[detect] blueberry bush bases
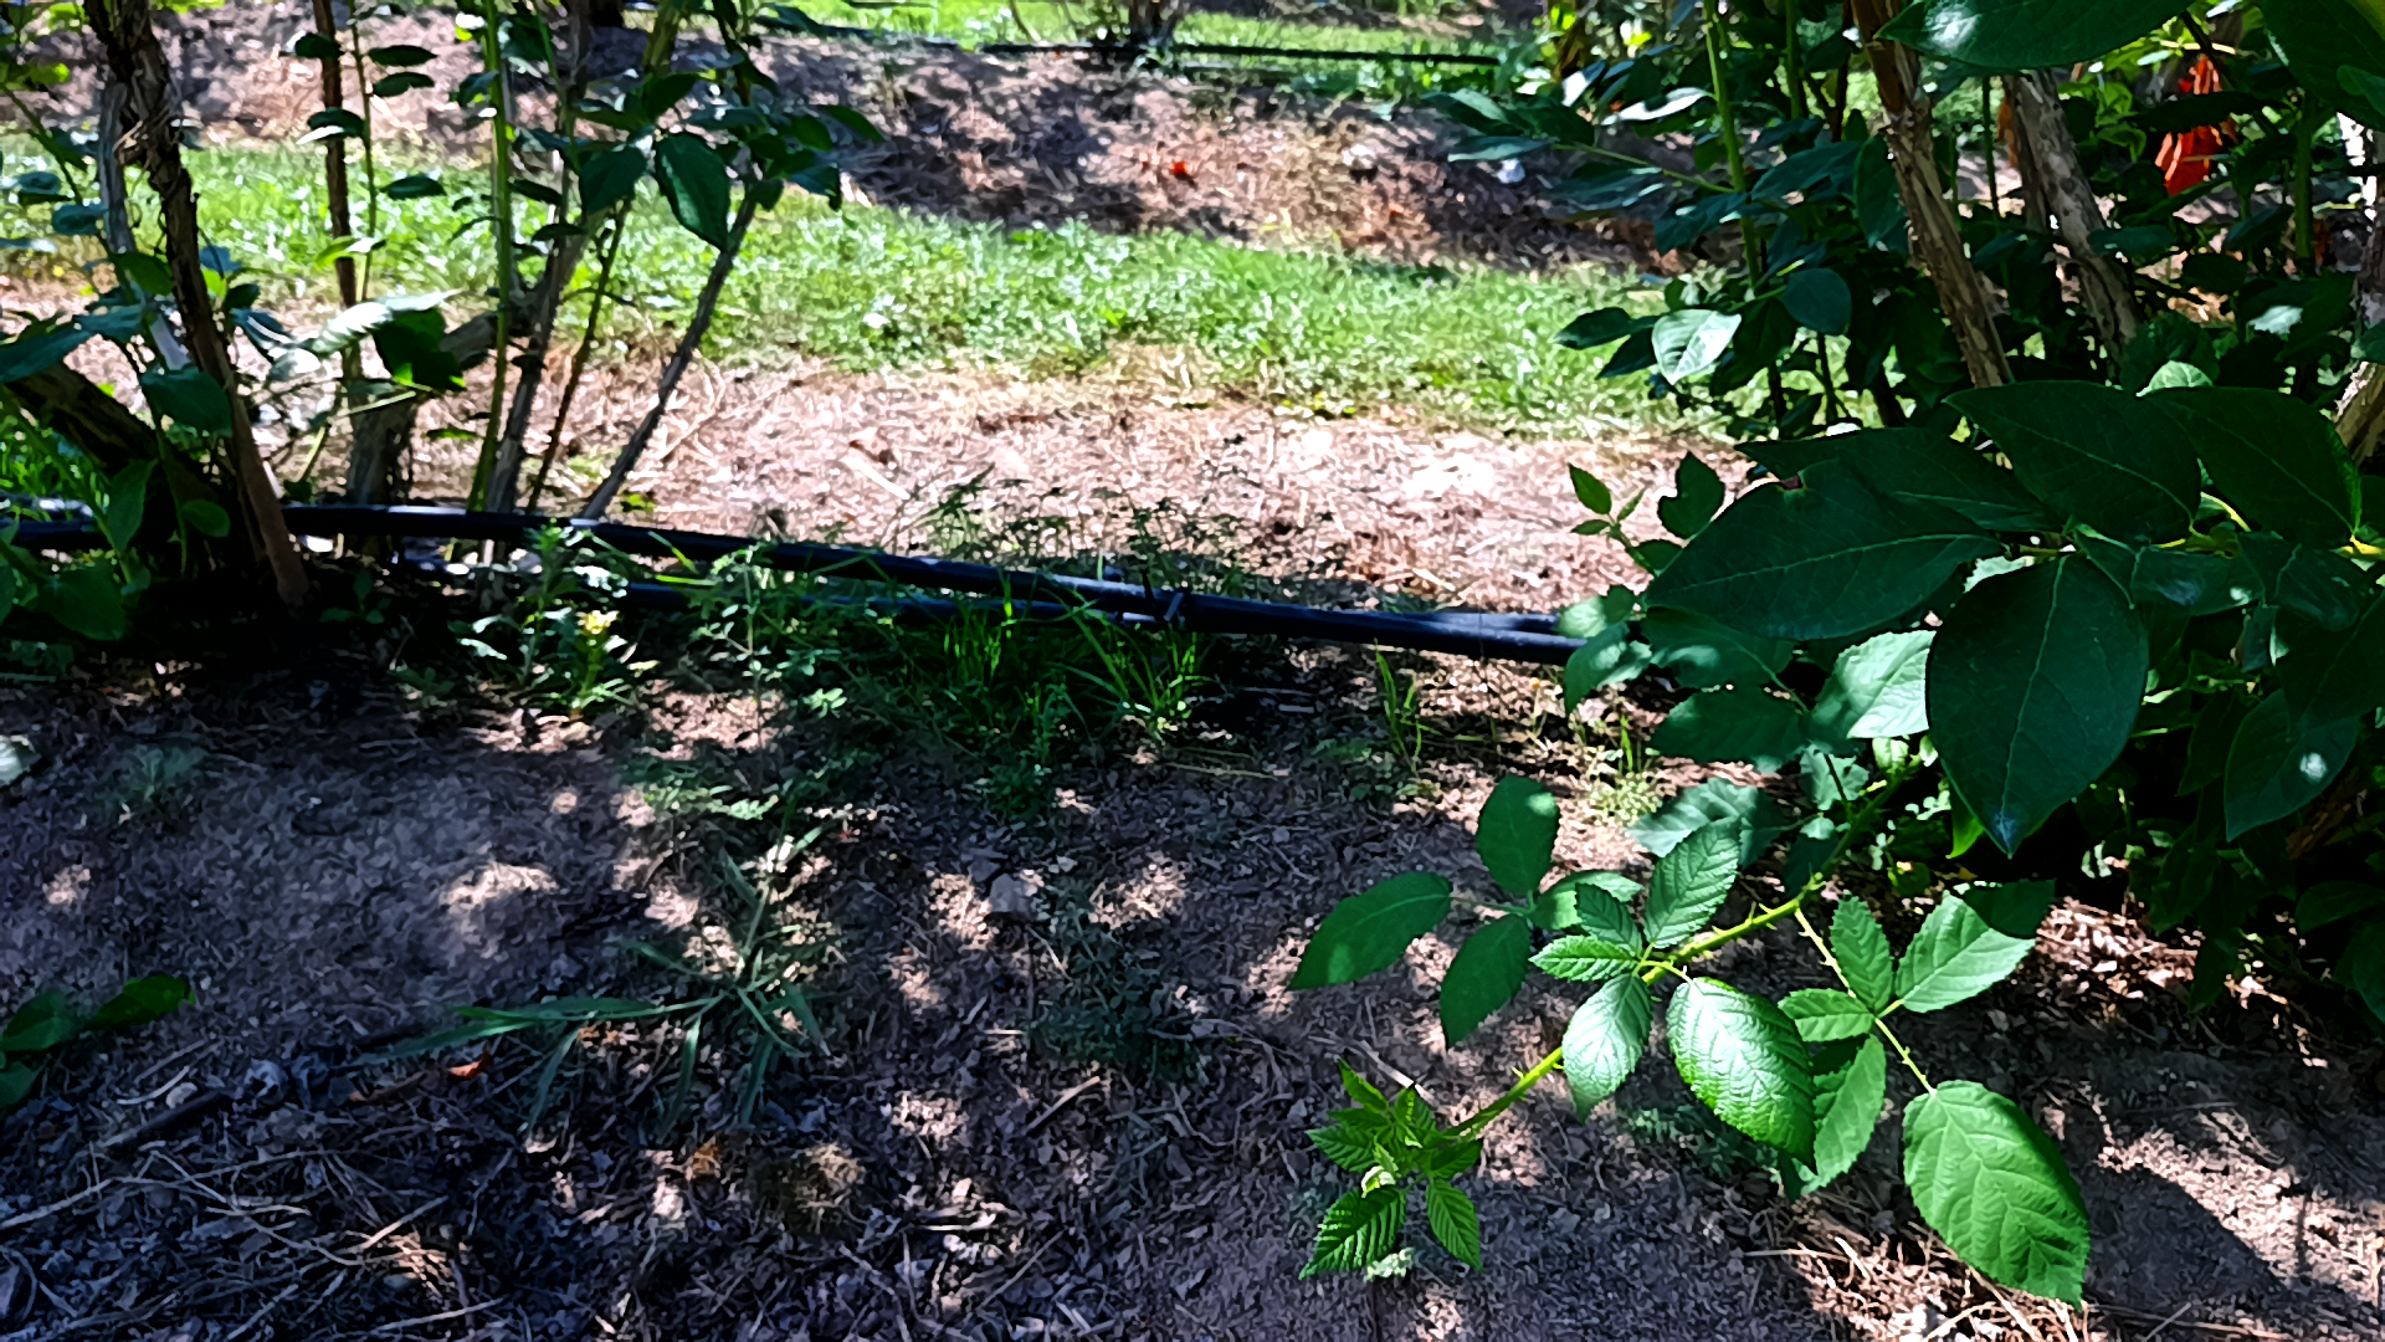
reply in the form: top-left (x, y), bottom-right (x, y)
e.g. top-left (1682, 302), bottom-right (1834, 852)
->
top-left (1, 173), bottom-right (740, 940)
top-left (1817, 38), bottom-right (2384, 1026)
